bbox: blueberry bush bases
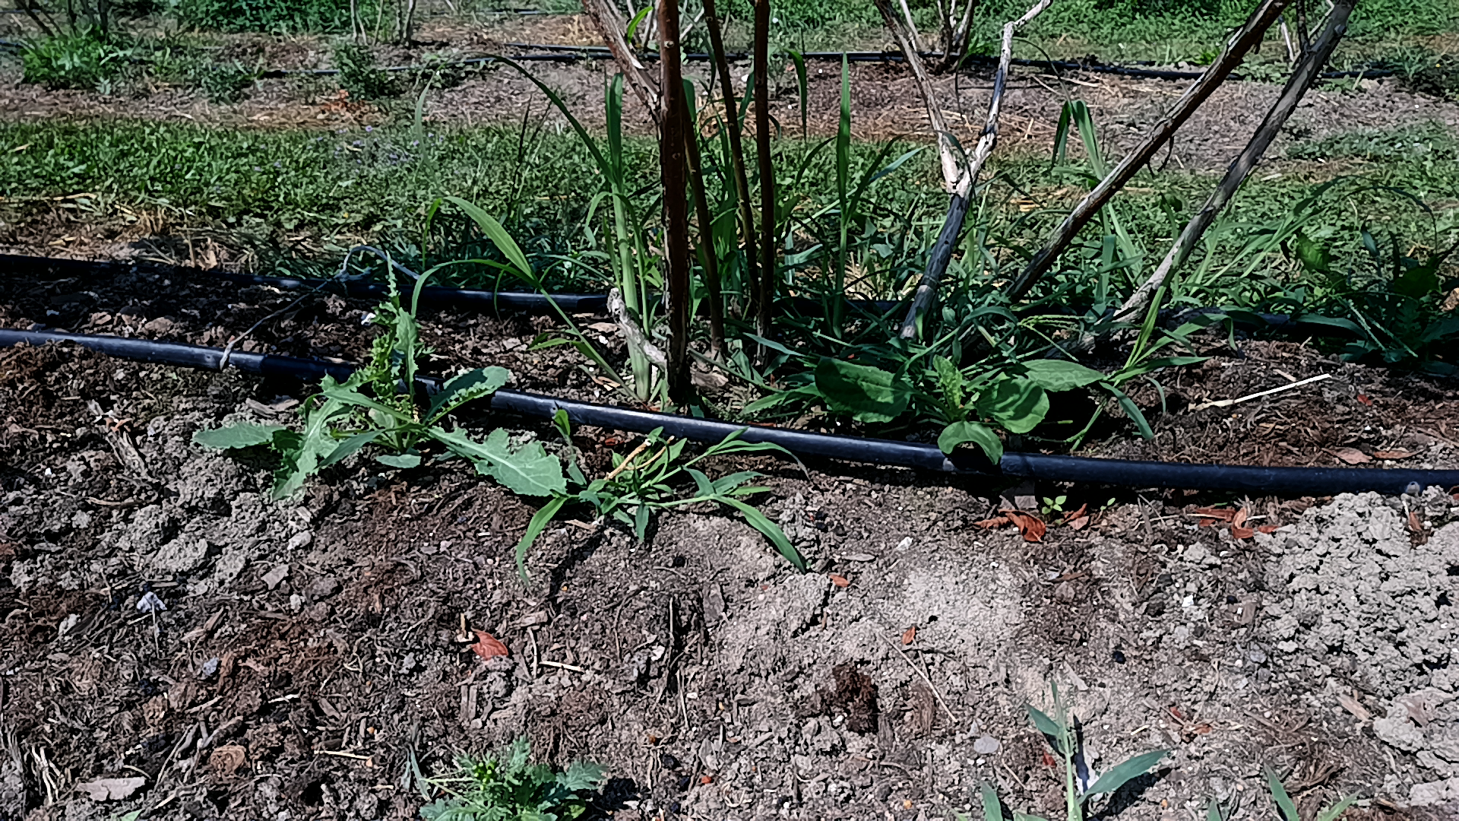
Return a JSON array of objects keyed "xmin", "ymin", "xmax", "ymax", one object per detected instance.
[
  {"xmin": 337, "ymin": 0, "xmax": 430, "ymax": 53},
  {"xmin": 614, "ymin": 0, "xmax": 732, "ymax": 70},
  {"xmin": 3, "ymin": 0, "xmax": 142, "ymax": 71},
  {"xmin": 892, "ymin": 19, "xmax": 996, "ymax": 89},
  {"xmin": 559, "ymin": 138, "xmax": 1228, "ymax": 515}
]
